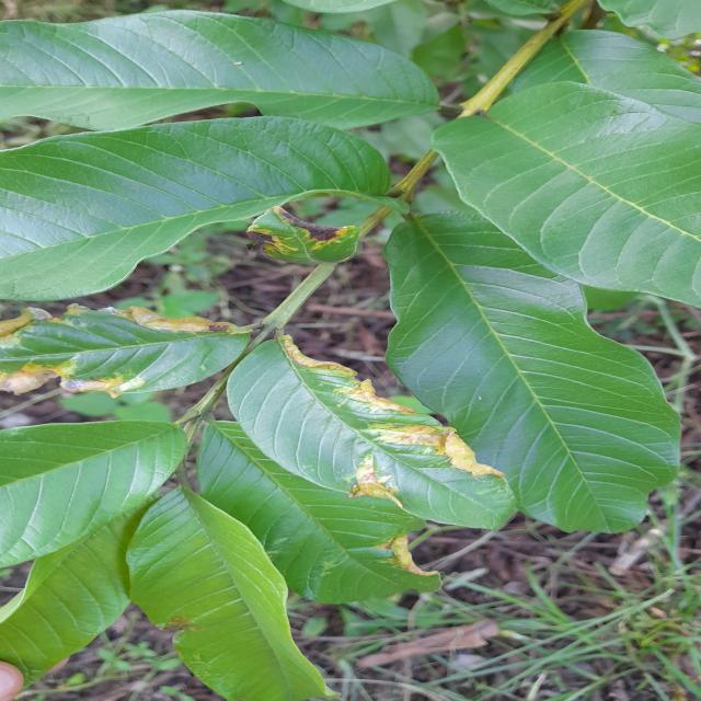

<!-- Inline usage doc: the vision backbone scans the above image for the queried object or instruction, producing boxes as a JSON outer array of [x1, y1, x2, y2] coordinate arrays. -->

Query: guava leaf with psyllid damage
[[216, 321, 536, 532]]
